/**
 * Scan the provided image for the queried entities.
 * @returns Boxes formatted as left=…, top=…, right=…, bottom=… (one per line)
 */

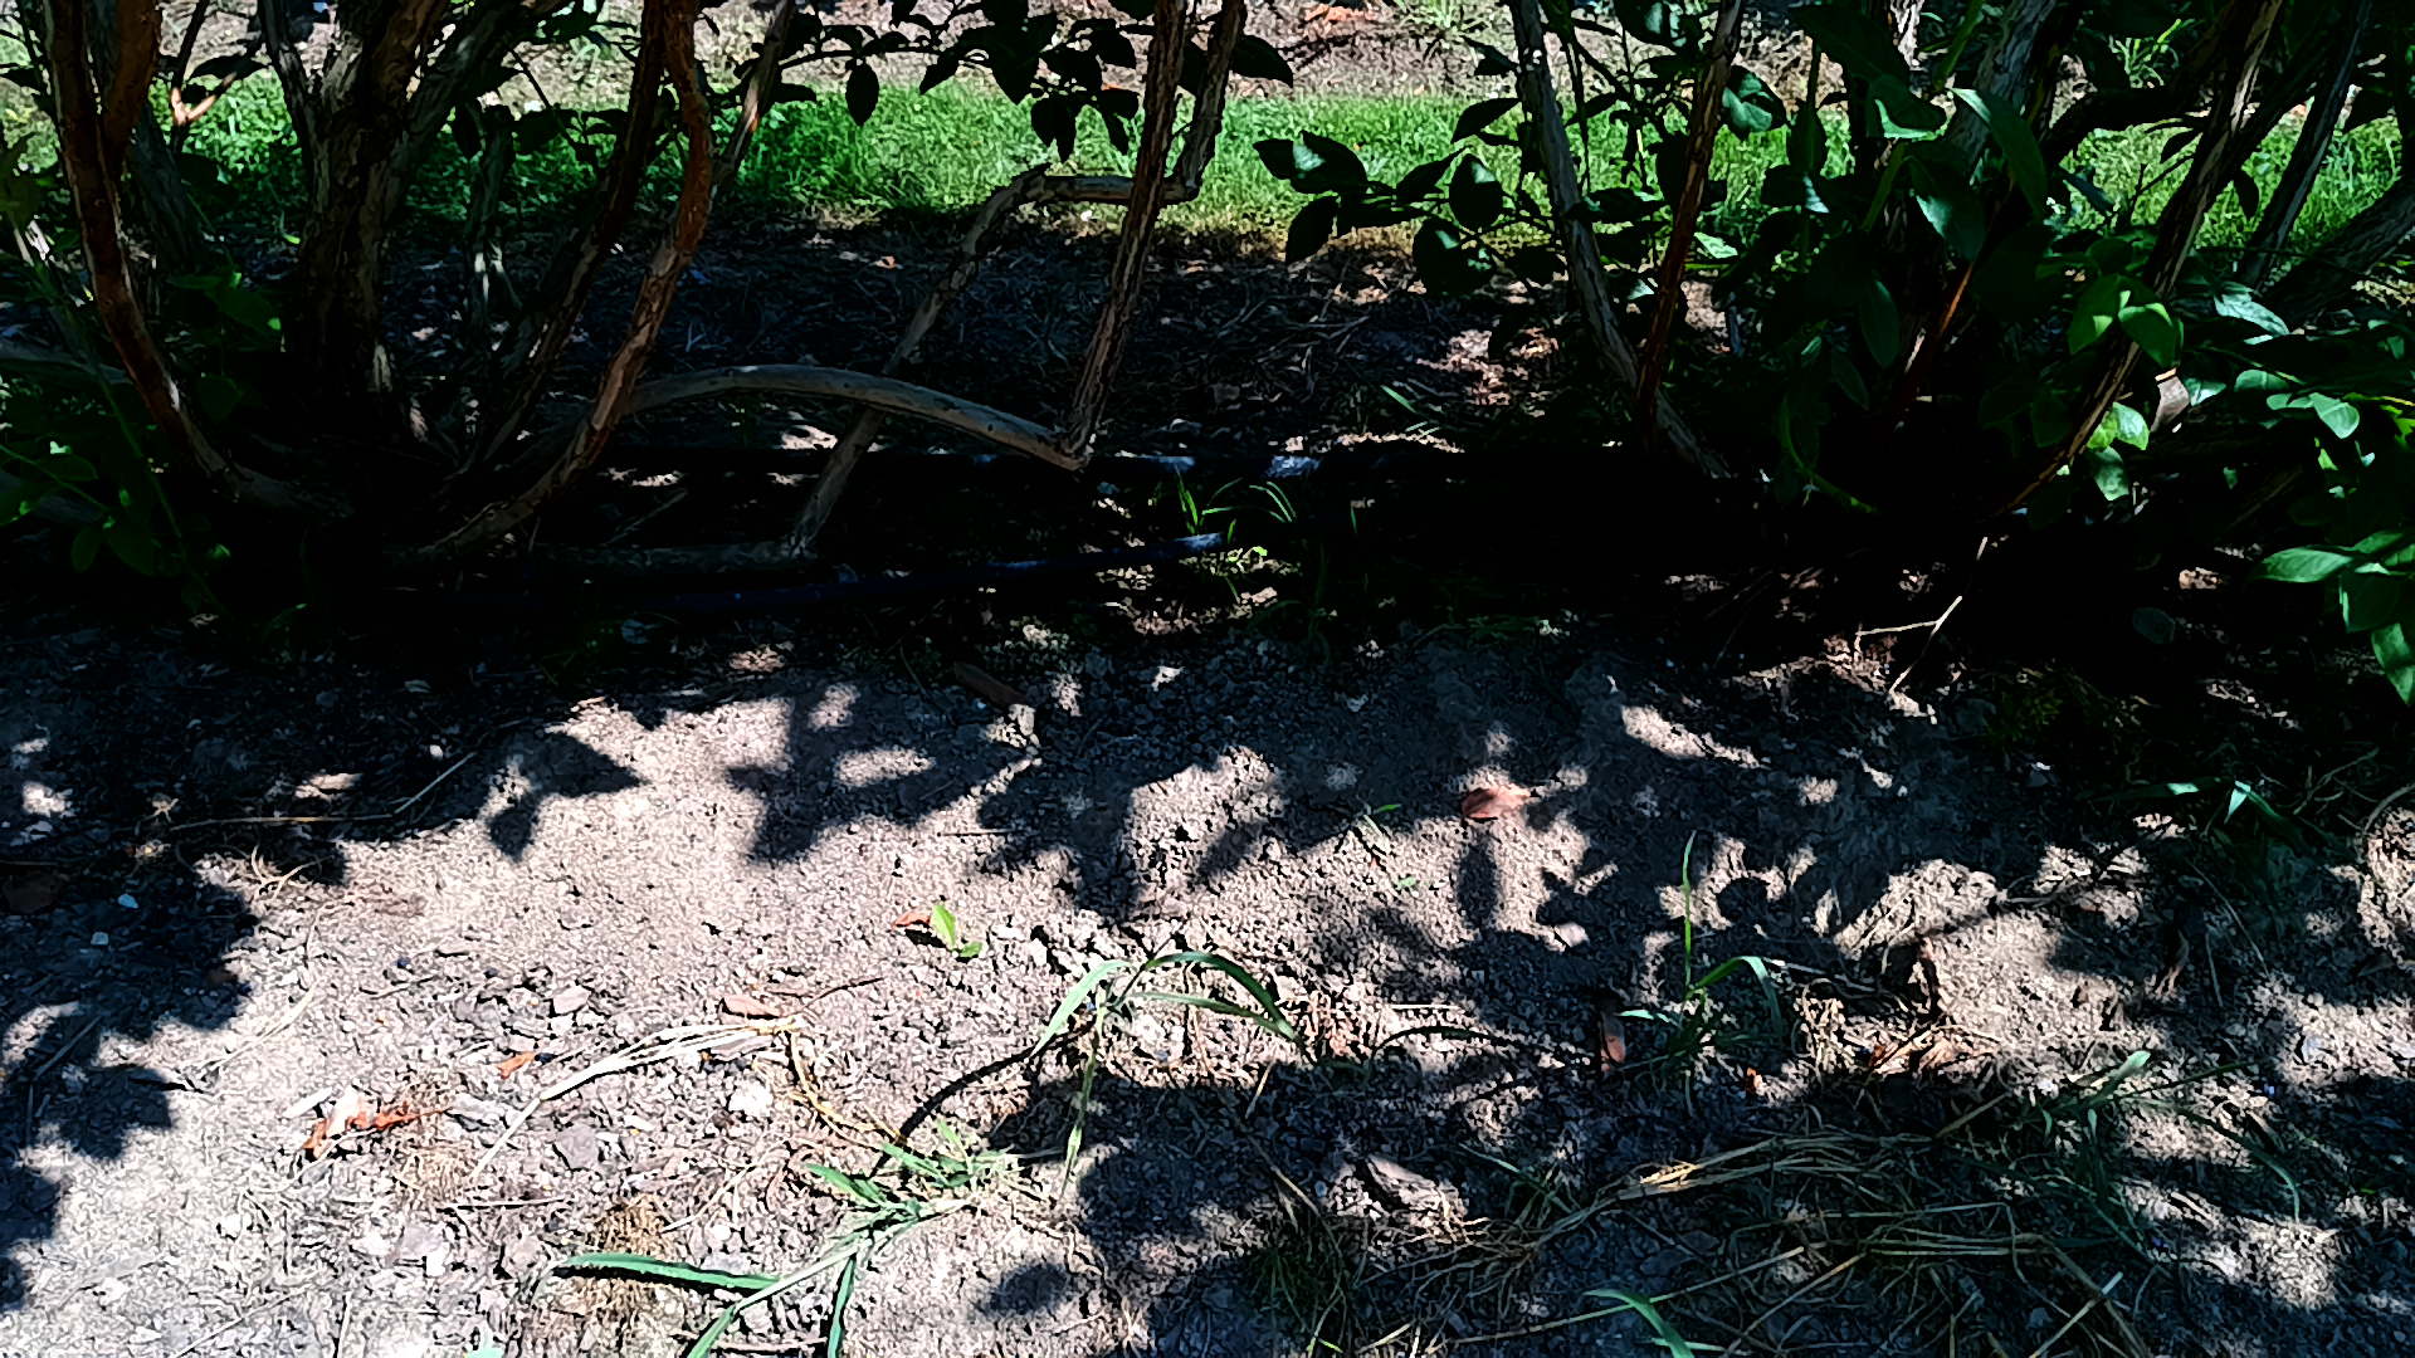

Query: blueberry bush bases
left=1511, top=97, right=2358, bottom=679
left=4, top=129, right=814, bottom=693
